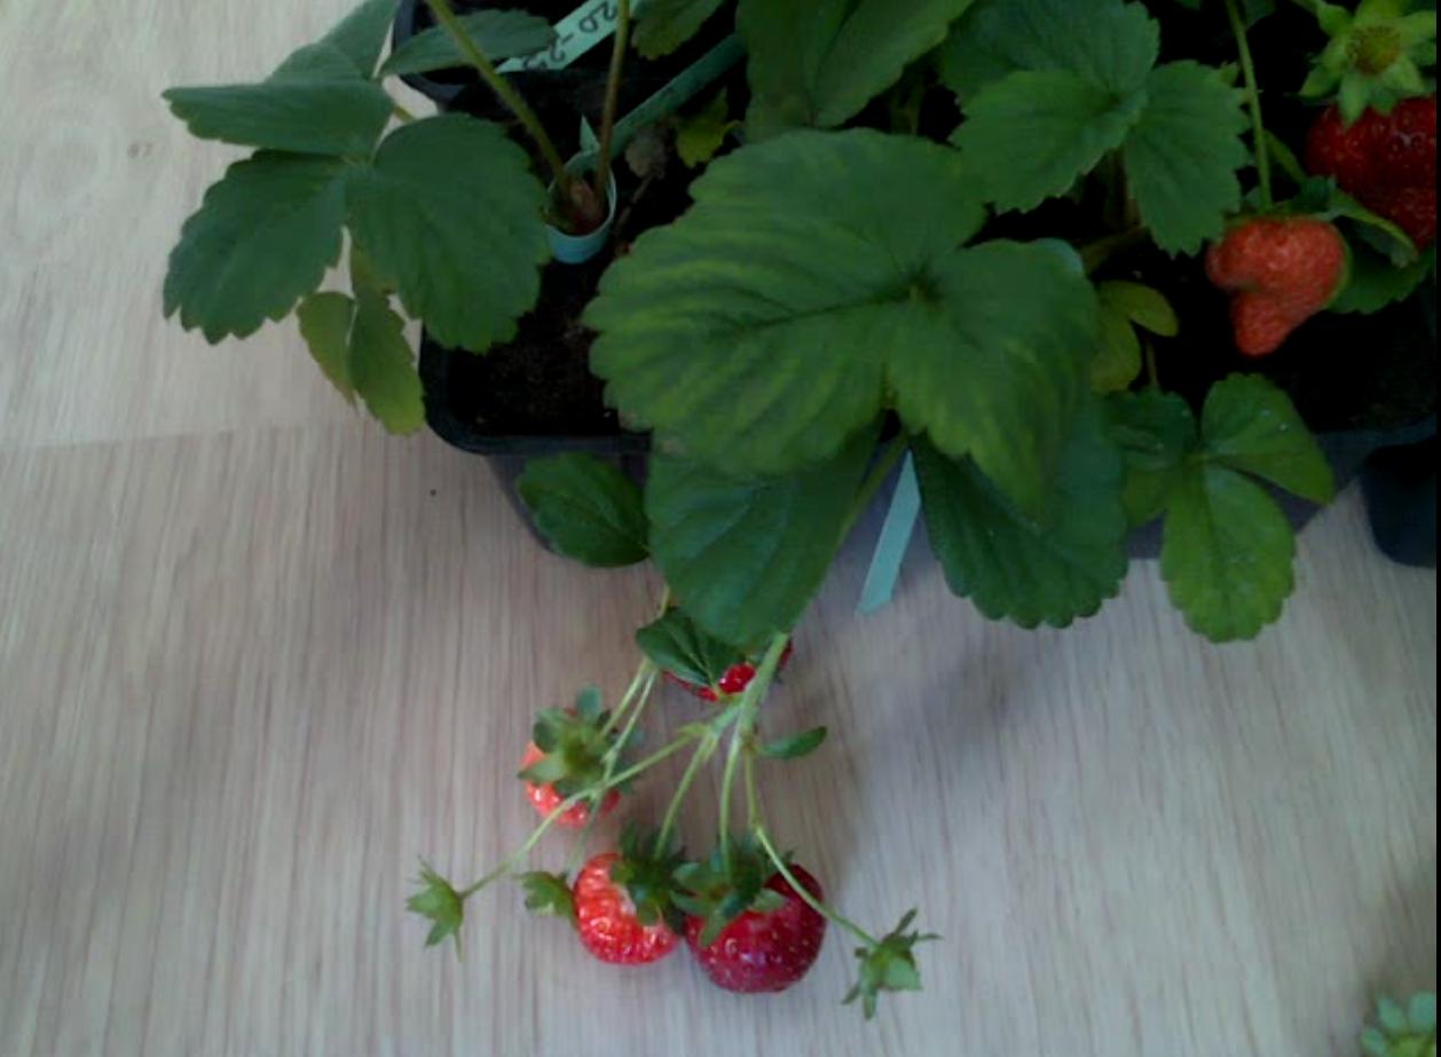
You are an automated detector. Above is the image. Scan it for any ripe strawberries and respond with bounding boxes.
[687,859,838,993]
[1188,199,1369,380]
[501,706,633,819]
[1282,77,1441,286]
[550,839,687,980]
[657,598,816,702]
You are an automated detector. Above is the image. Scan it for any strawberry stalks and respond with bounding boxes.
[805,879,892,963]
[437,849,527,909]
[709,717,762,918]
[626,723,741,900]
[573,596,662,790]
[1215,8,1290,234]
